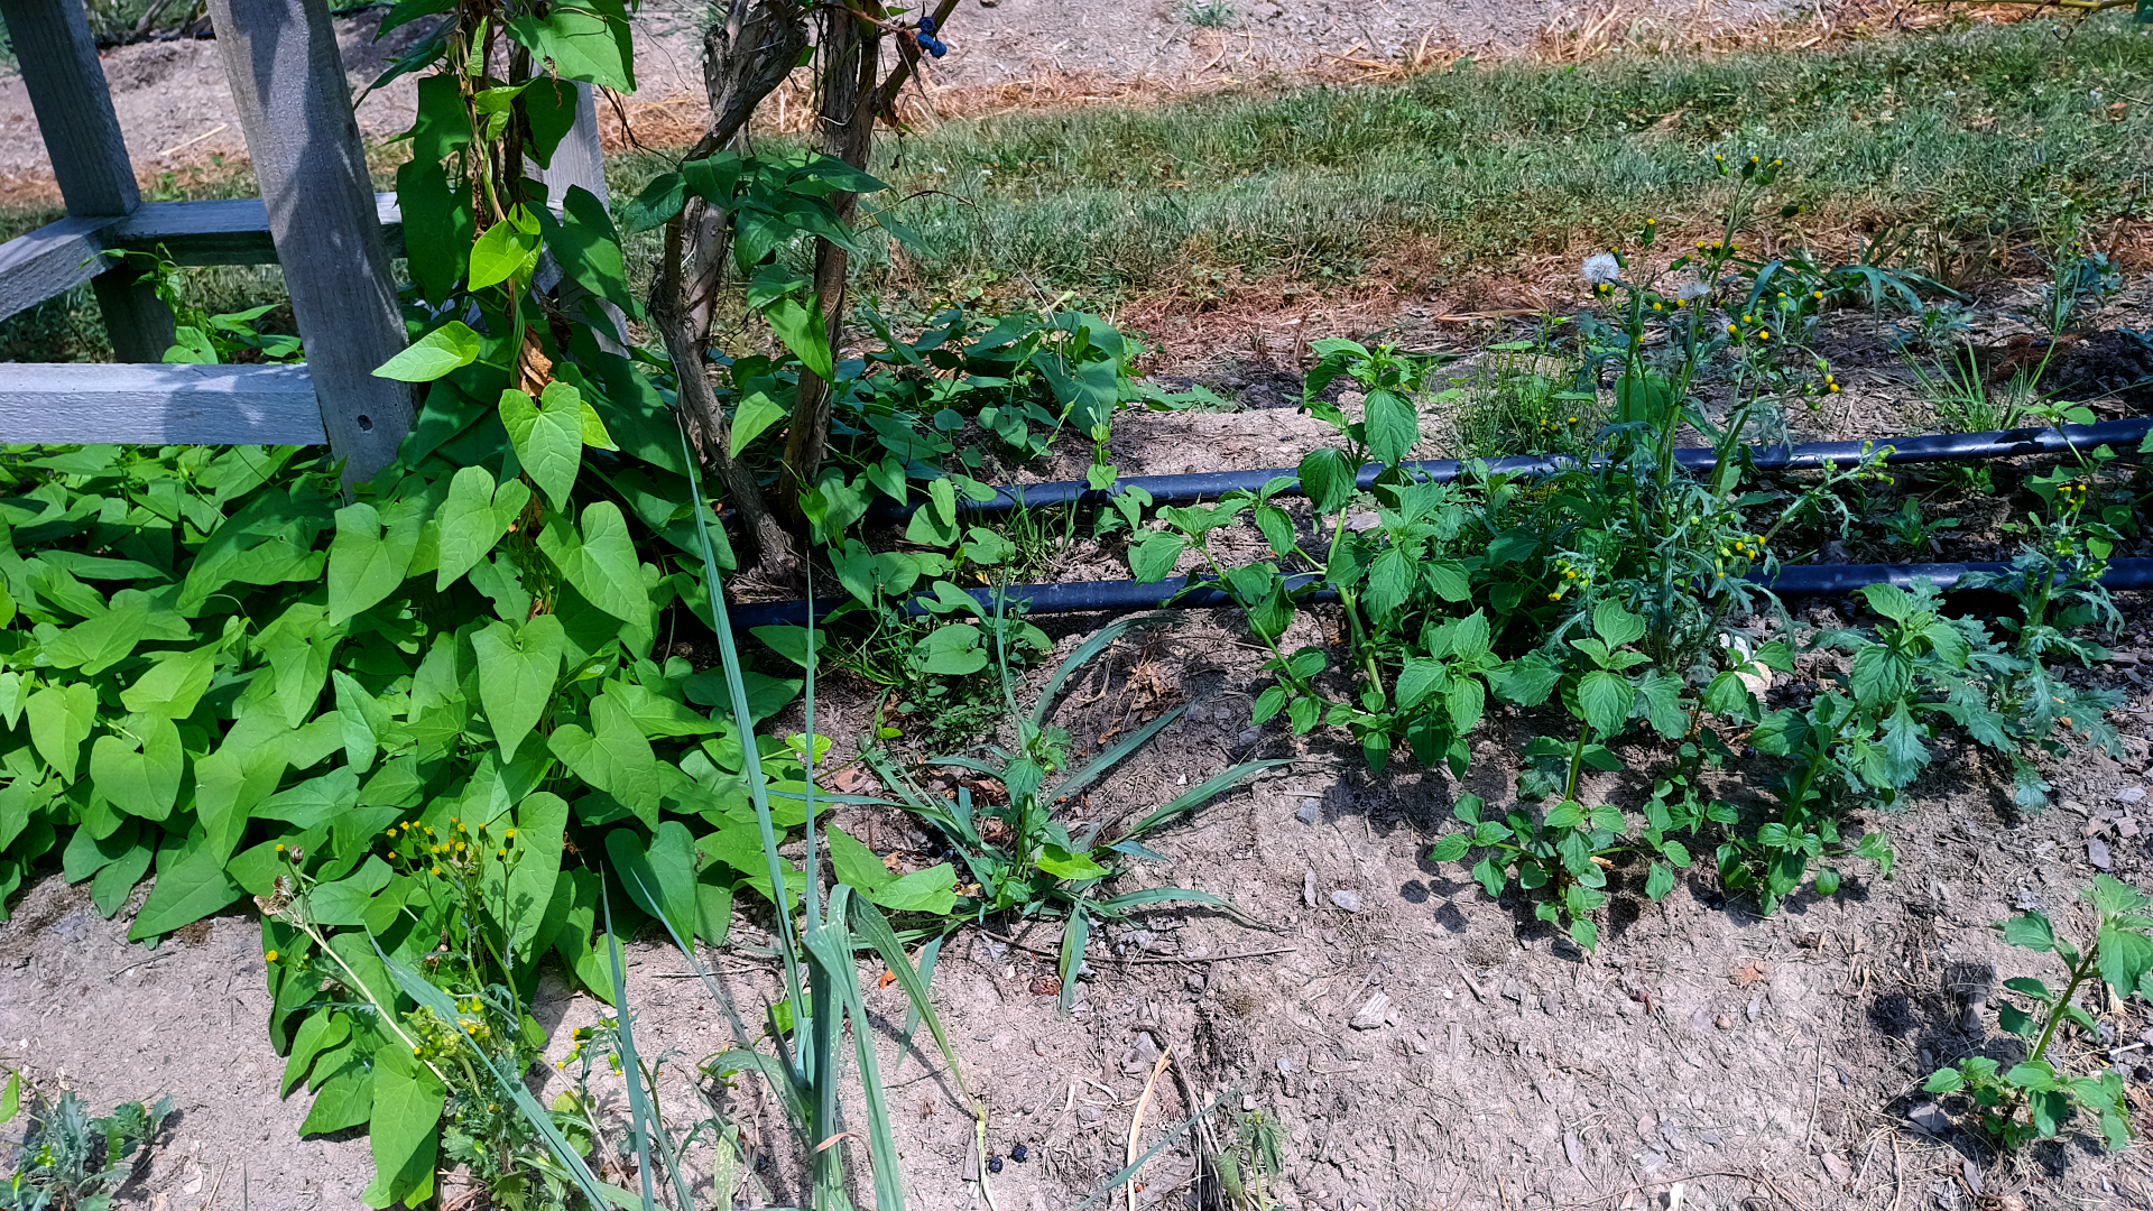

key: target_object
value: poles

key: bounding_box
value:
[0,0,197,381]
[502,22,644,372]
[204,0,444,524]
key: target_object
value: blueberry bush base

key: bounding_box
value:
[481,235,934,743]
